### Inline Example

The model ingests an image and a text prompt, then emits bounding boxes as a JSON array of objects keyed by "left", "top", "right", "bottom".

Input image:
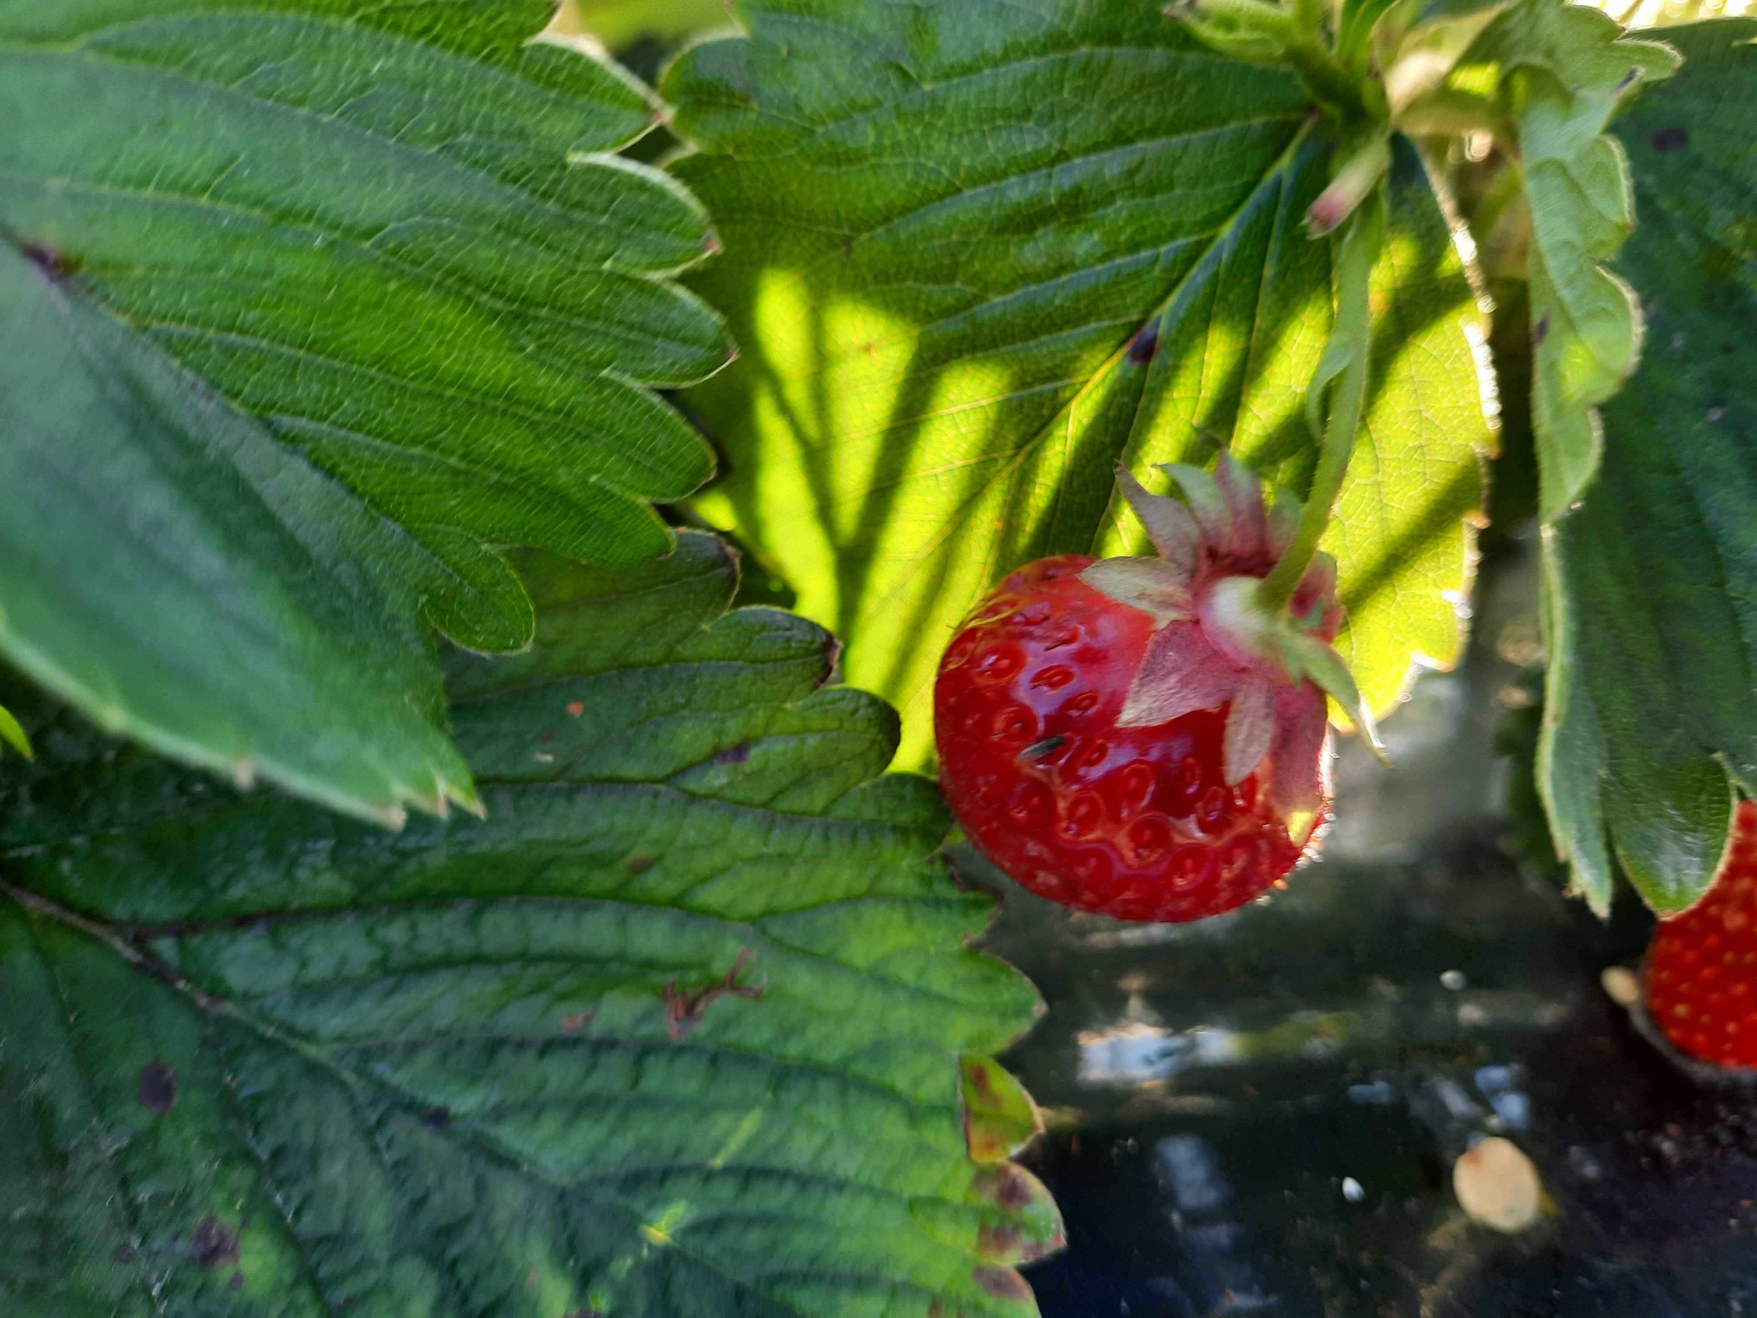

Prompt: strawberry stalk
[{"left": 1196, "top": 201, "right": 1377, "bottom": 716}]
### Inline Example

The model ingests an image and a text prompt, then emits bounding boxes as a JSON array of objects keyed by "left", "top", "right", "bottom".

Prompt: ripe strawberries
[
  {"left": 1626, "top": 763, "right": 1757, "bottom": 1082},
  {"left": 938, "top": 544, "right": 1385, "bottom": 926}
]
